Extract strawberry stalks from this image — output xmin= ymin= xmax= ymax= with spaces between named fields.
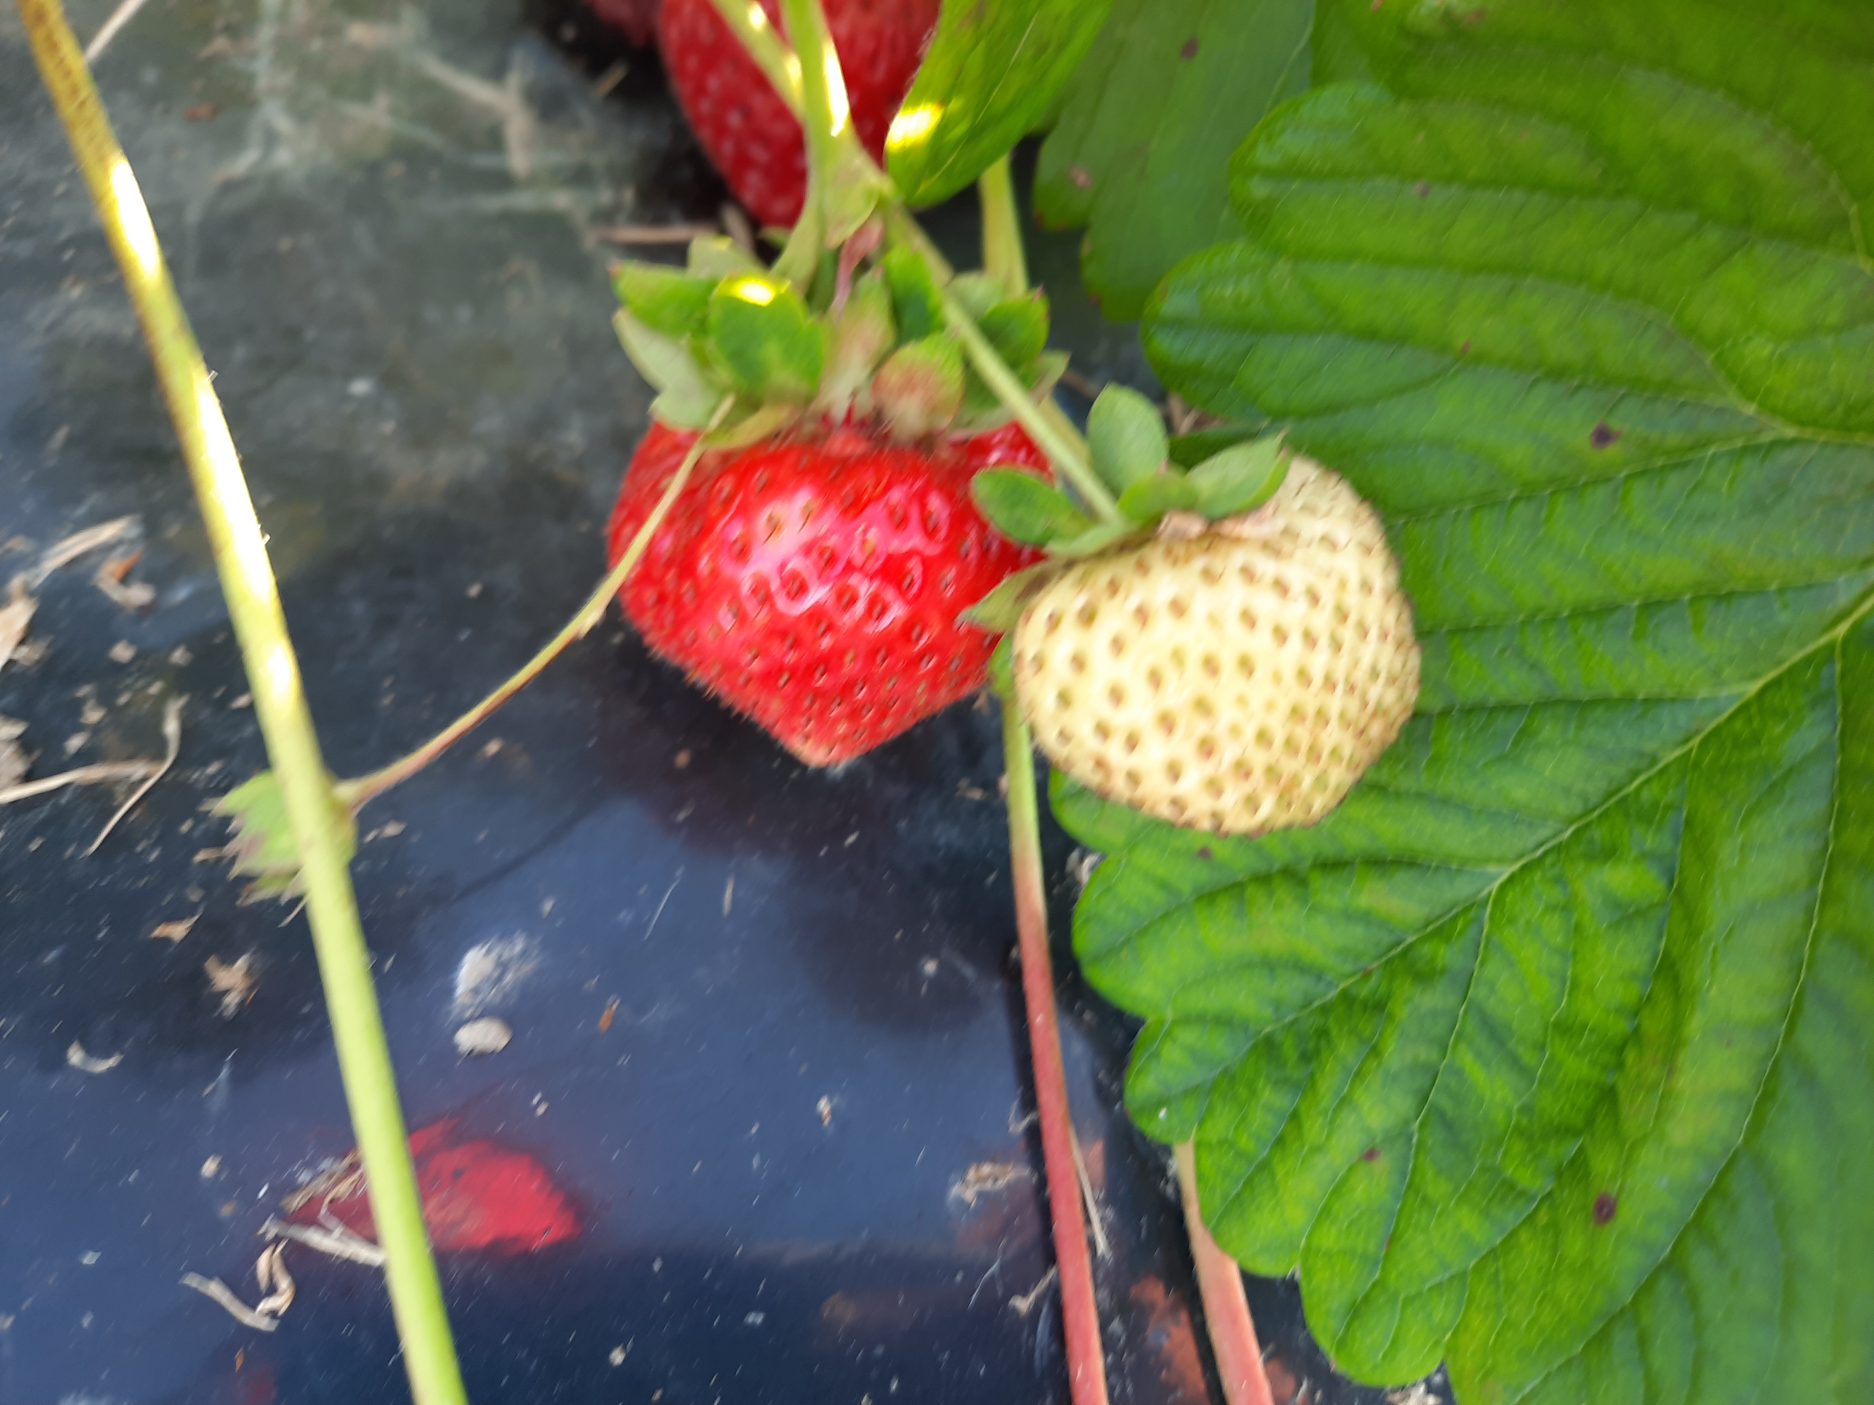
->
xmin=927 ymin=257 xmax=1158 ymax=552
xmin=816 ymin=183 xmax=899 ymax=464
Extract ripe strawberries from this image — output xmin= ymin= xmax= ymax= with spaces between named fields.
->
xmin=692 ymin=0 xmax=954 ymax=242
xmin=624 ymin=400 xmax=1051 ymax=785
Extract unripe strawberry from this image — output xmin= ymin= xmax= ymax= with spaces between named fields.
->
xmin=1027 ymin=464 xmax=1419 ymax=801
